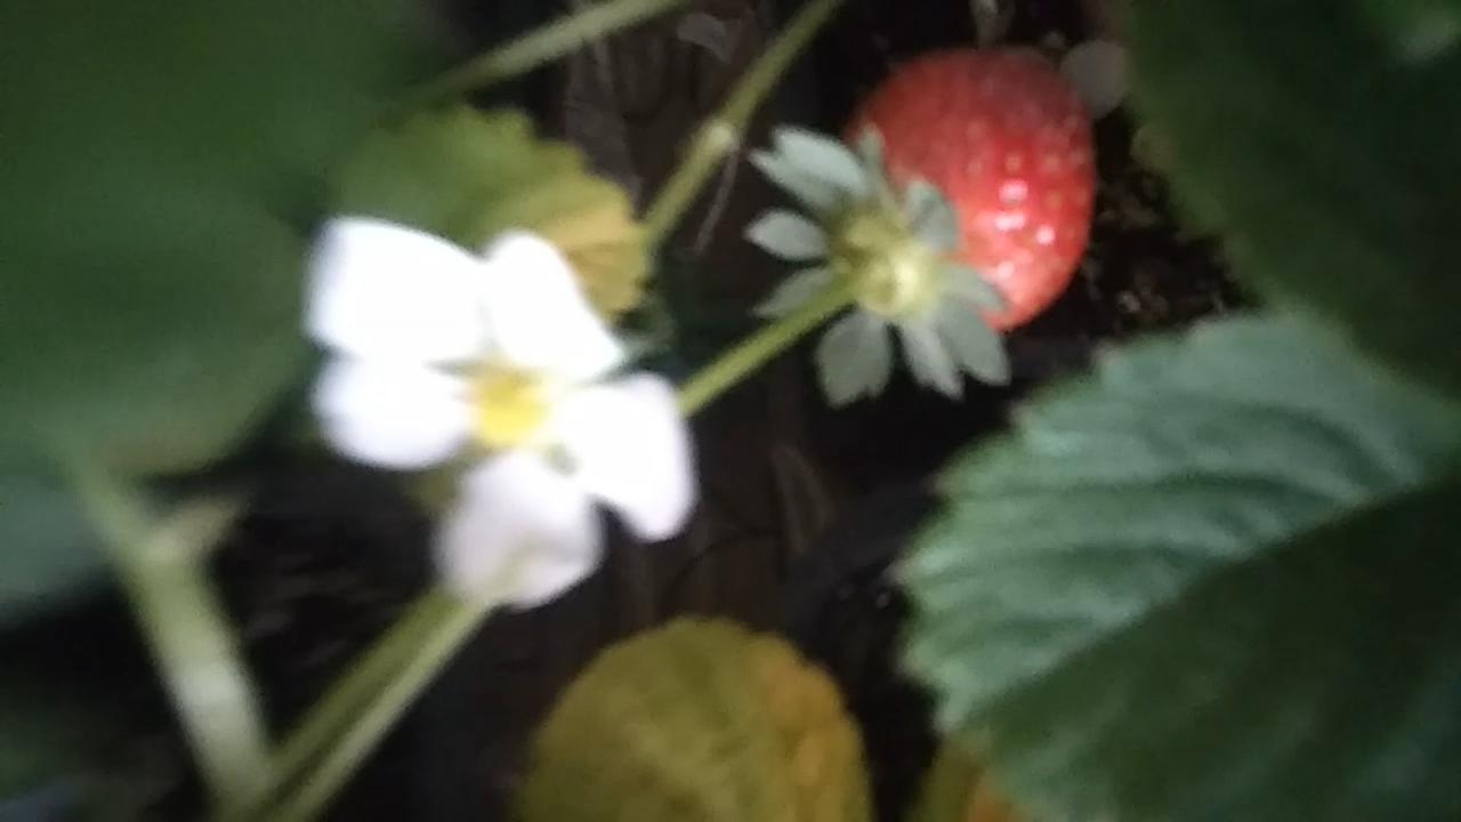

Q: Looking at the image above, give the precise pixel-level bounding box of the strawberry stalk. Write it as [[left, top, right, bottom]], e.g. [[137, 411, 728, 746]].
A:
[[676, 220, 946, 353]]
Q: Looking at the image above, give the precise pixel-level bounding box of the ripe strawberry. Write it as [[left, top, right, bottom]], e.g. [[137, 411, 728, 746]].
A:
[[839, 38, 1099, 330]]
